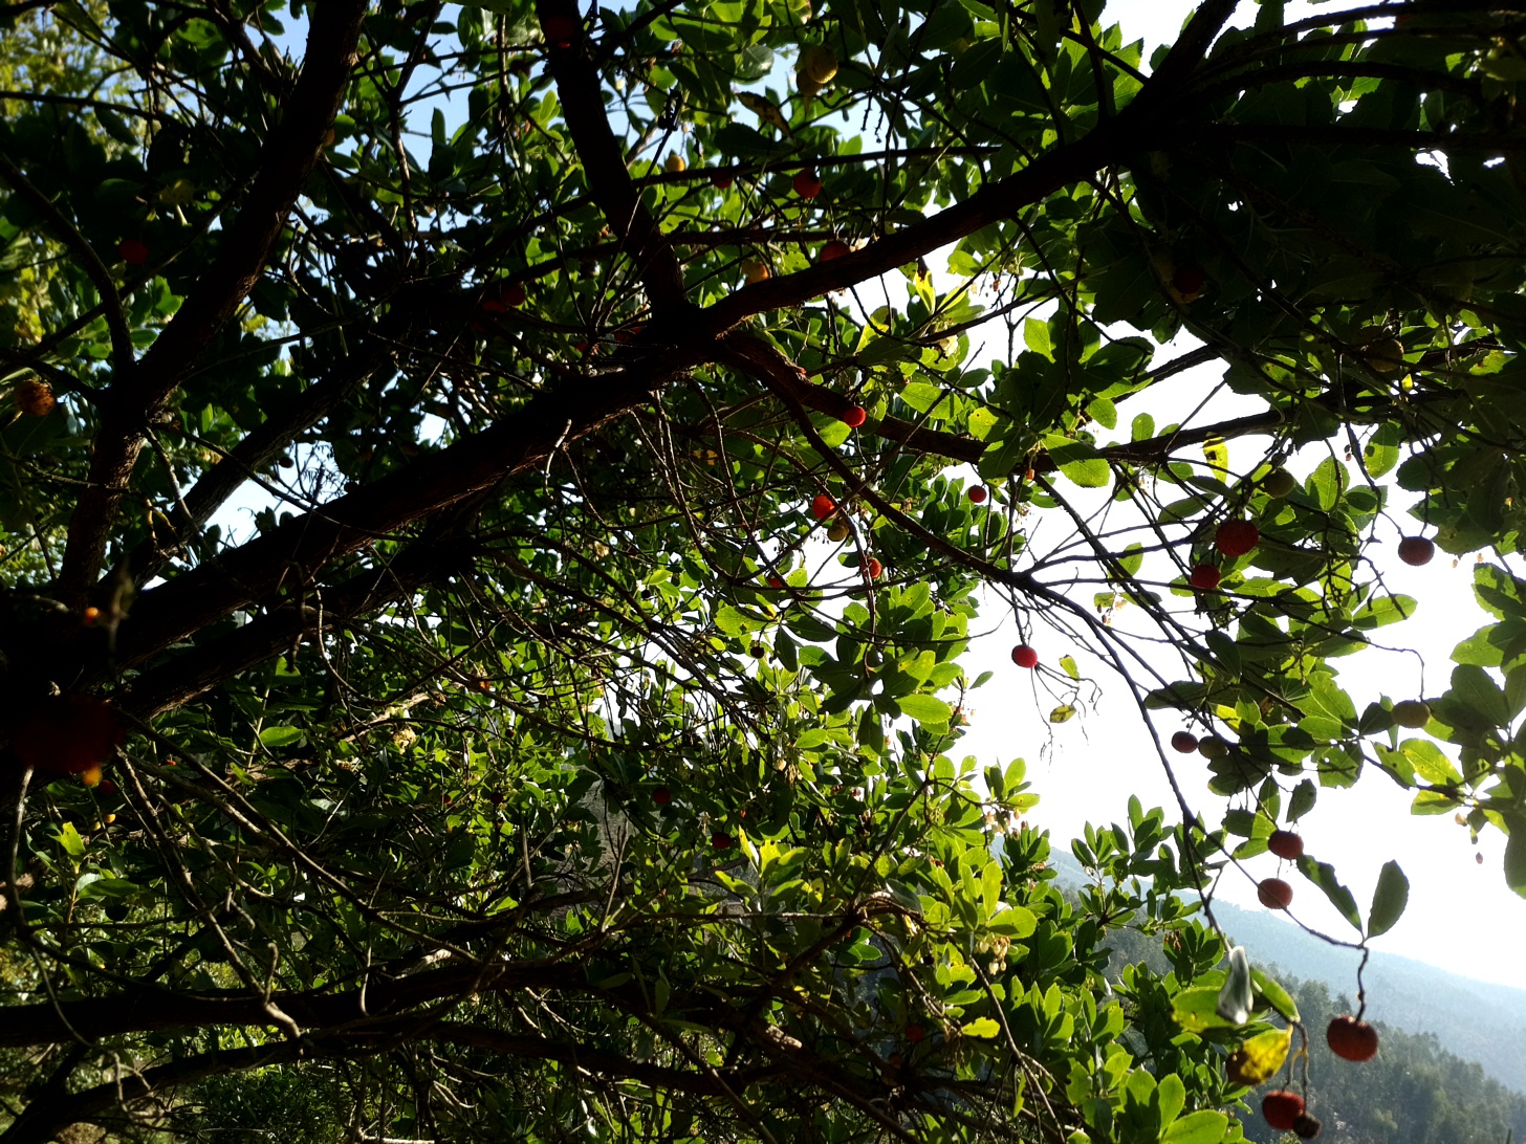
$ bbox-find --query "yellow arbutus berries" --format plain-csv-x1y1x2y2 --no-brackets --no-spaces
14,379,56,415
805,42,840,84
827,524,847,541
748,258,773,282
663,153,687,173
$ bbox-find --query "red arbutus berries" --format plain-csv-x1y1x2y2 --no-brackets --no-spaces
859,555,882,577
1322,1013,1379,1061
818,242,854,265
843,403,868,428
1397,534,1435,567
1257,874,1294,912
710,171,735,191
118,235,152,261
1171,728,1197,754
811,494,837,519
1214,519,1258,557
1261,1090,1304,1133
793,170,823,200
710,831,733,850
1188,566,1221,591
765,575,783,589
653,786,670,803
969,484,987,503
1012,643,1039,669
1268,830,1303,862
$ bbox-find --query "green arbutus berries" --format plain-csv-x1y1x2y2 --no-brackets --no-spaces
1198,733,1229,759
1389,700,1430,730
1364,338,1407,375
1261,472,1295,498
